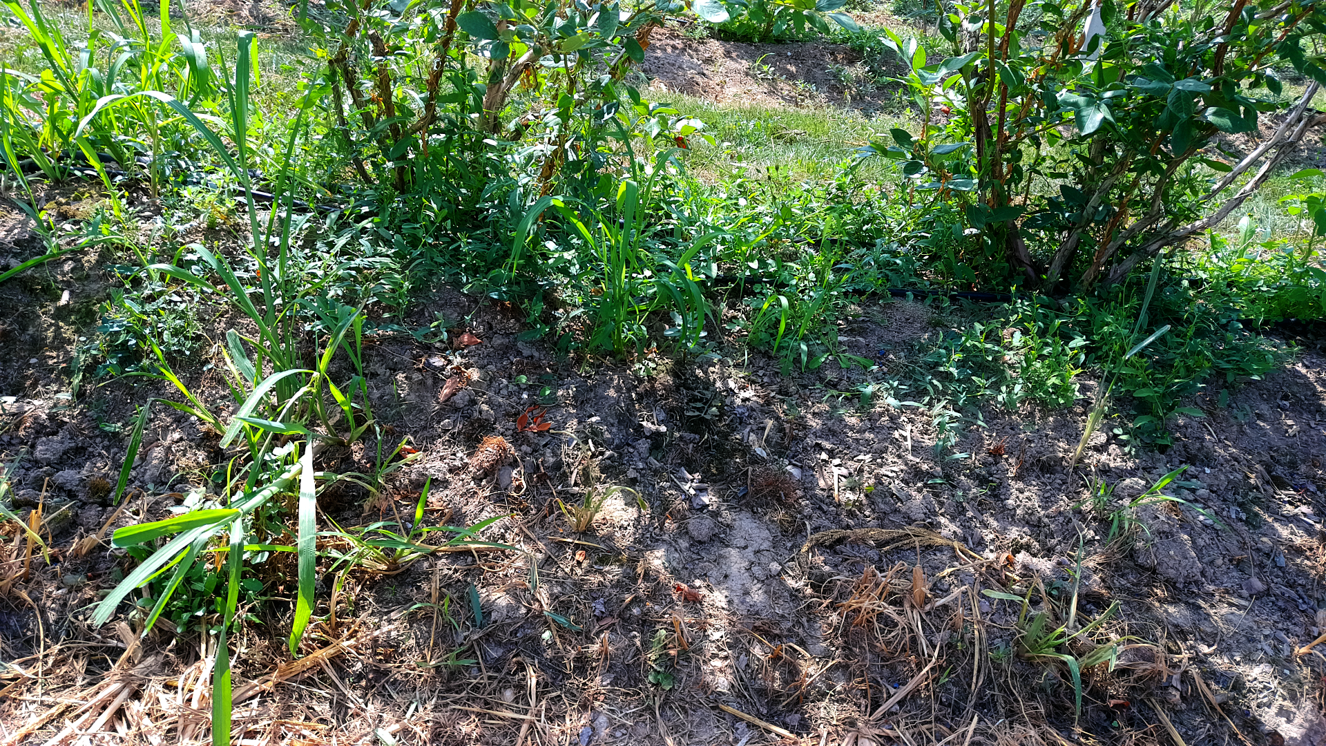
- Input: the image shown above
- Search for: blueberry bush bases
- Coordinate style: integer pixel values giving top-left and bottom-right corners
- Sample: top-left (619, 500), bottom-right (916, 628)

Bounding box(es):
top-left (930, 162), bottom-right (1245, 363)
top-left (314, 102), bottom-right (602, 288)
